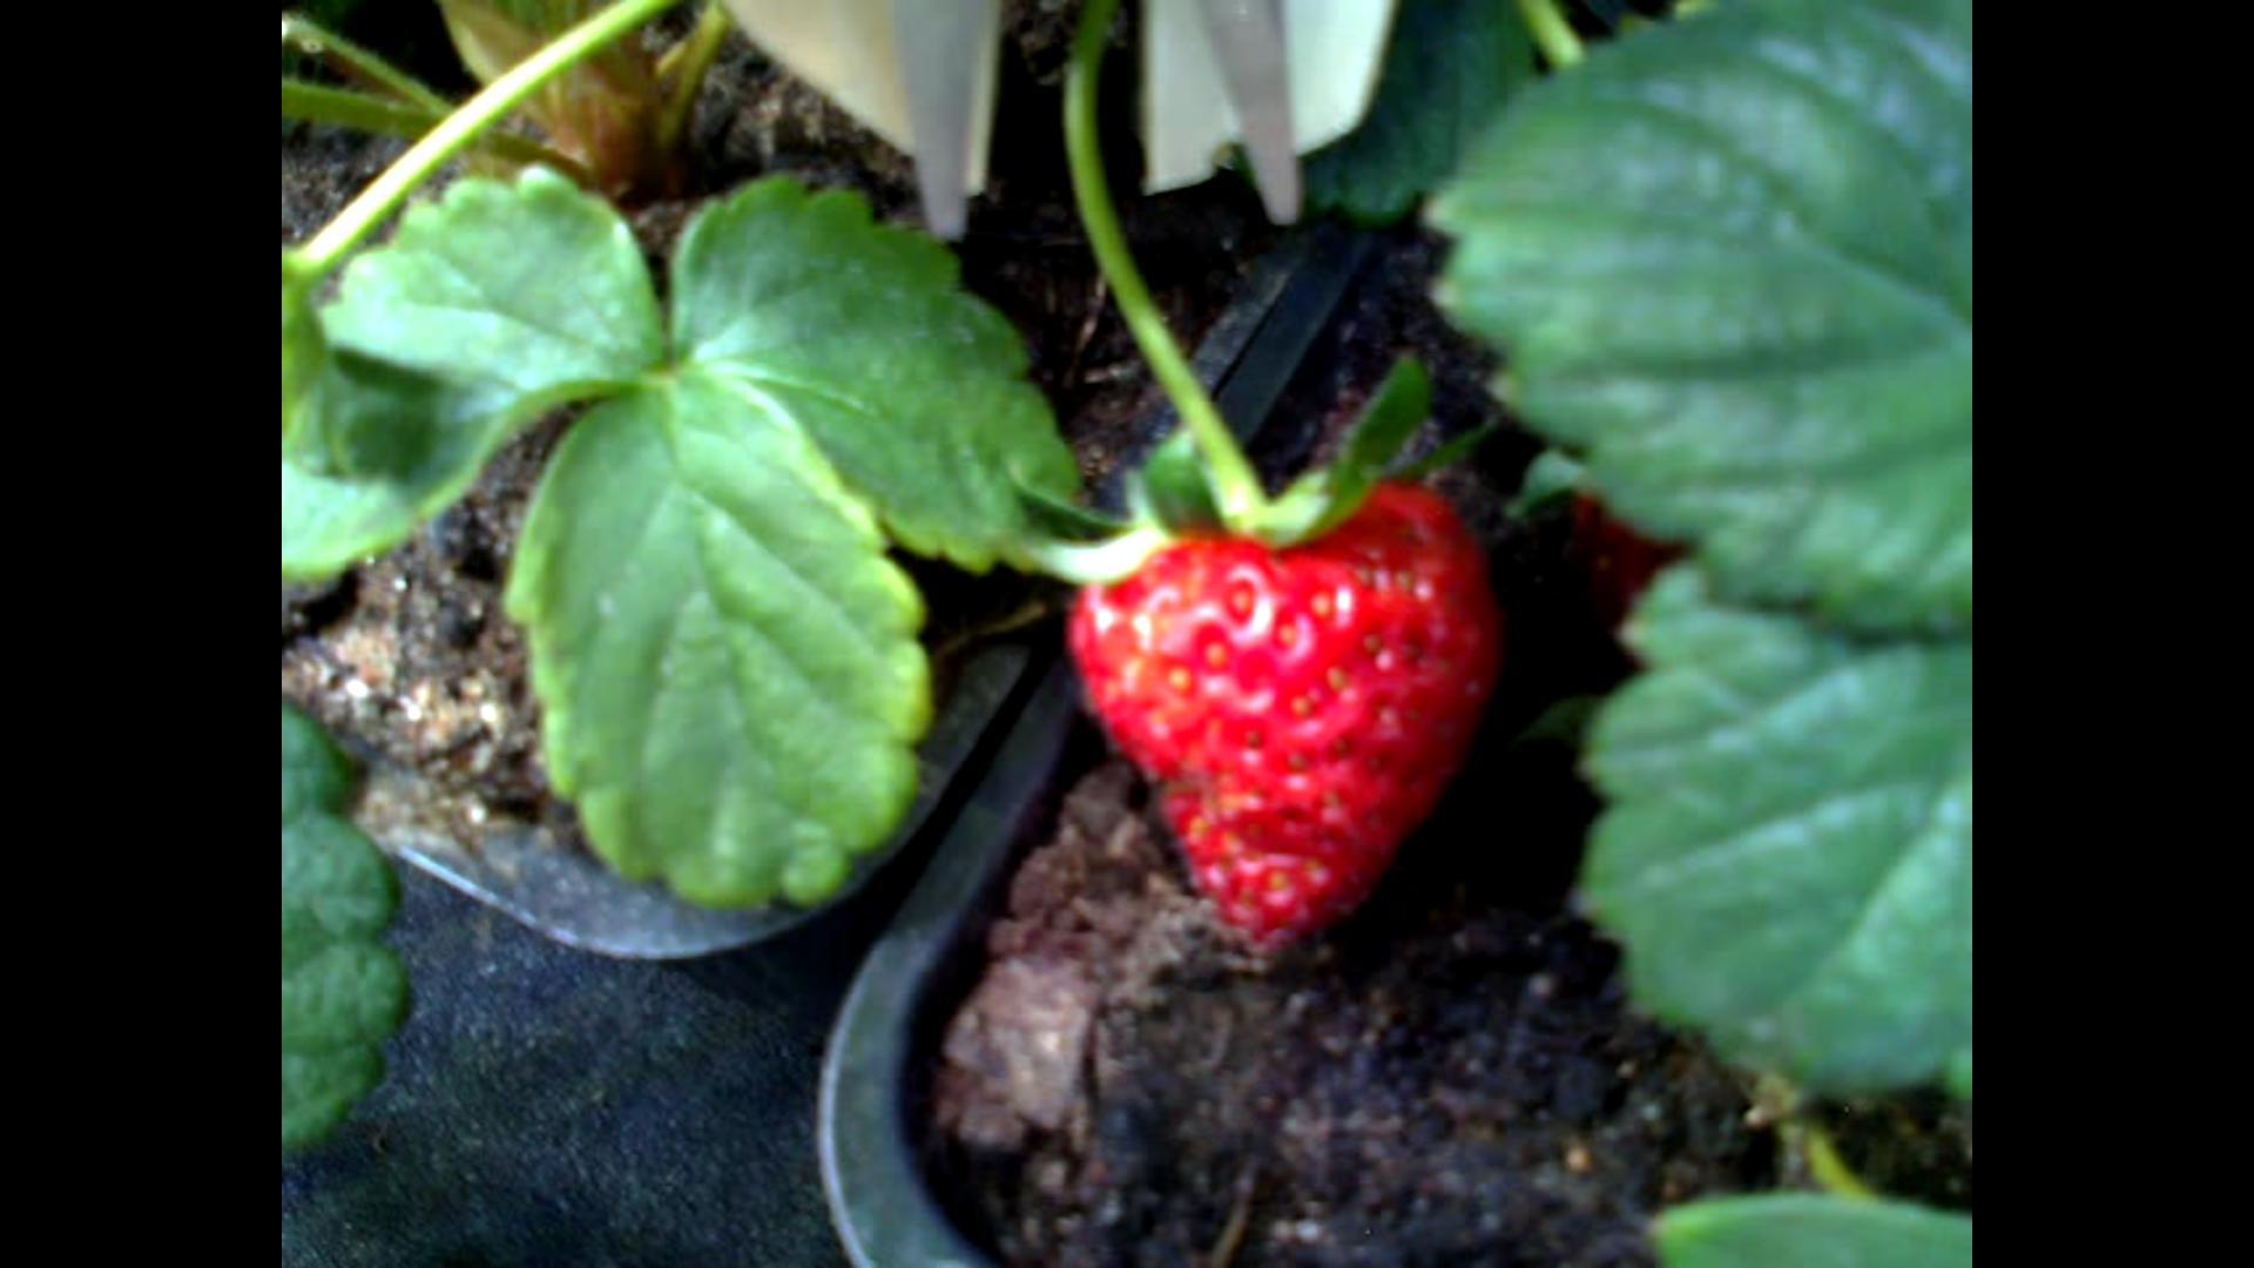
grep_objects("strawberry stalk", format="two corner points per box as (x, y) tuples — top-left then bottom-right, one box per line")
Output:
(1075, 179), (1360, 536)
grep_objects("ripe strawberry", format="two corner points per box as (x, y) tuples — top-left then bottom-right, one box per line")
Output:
(1024, 481), (1513, 963)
